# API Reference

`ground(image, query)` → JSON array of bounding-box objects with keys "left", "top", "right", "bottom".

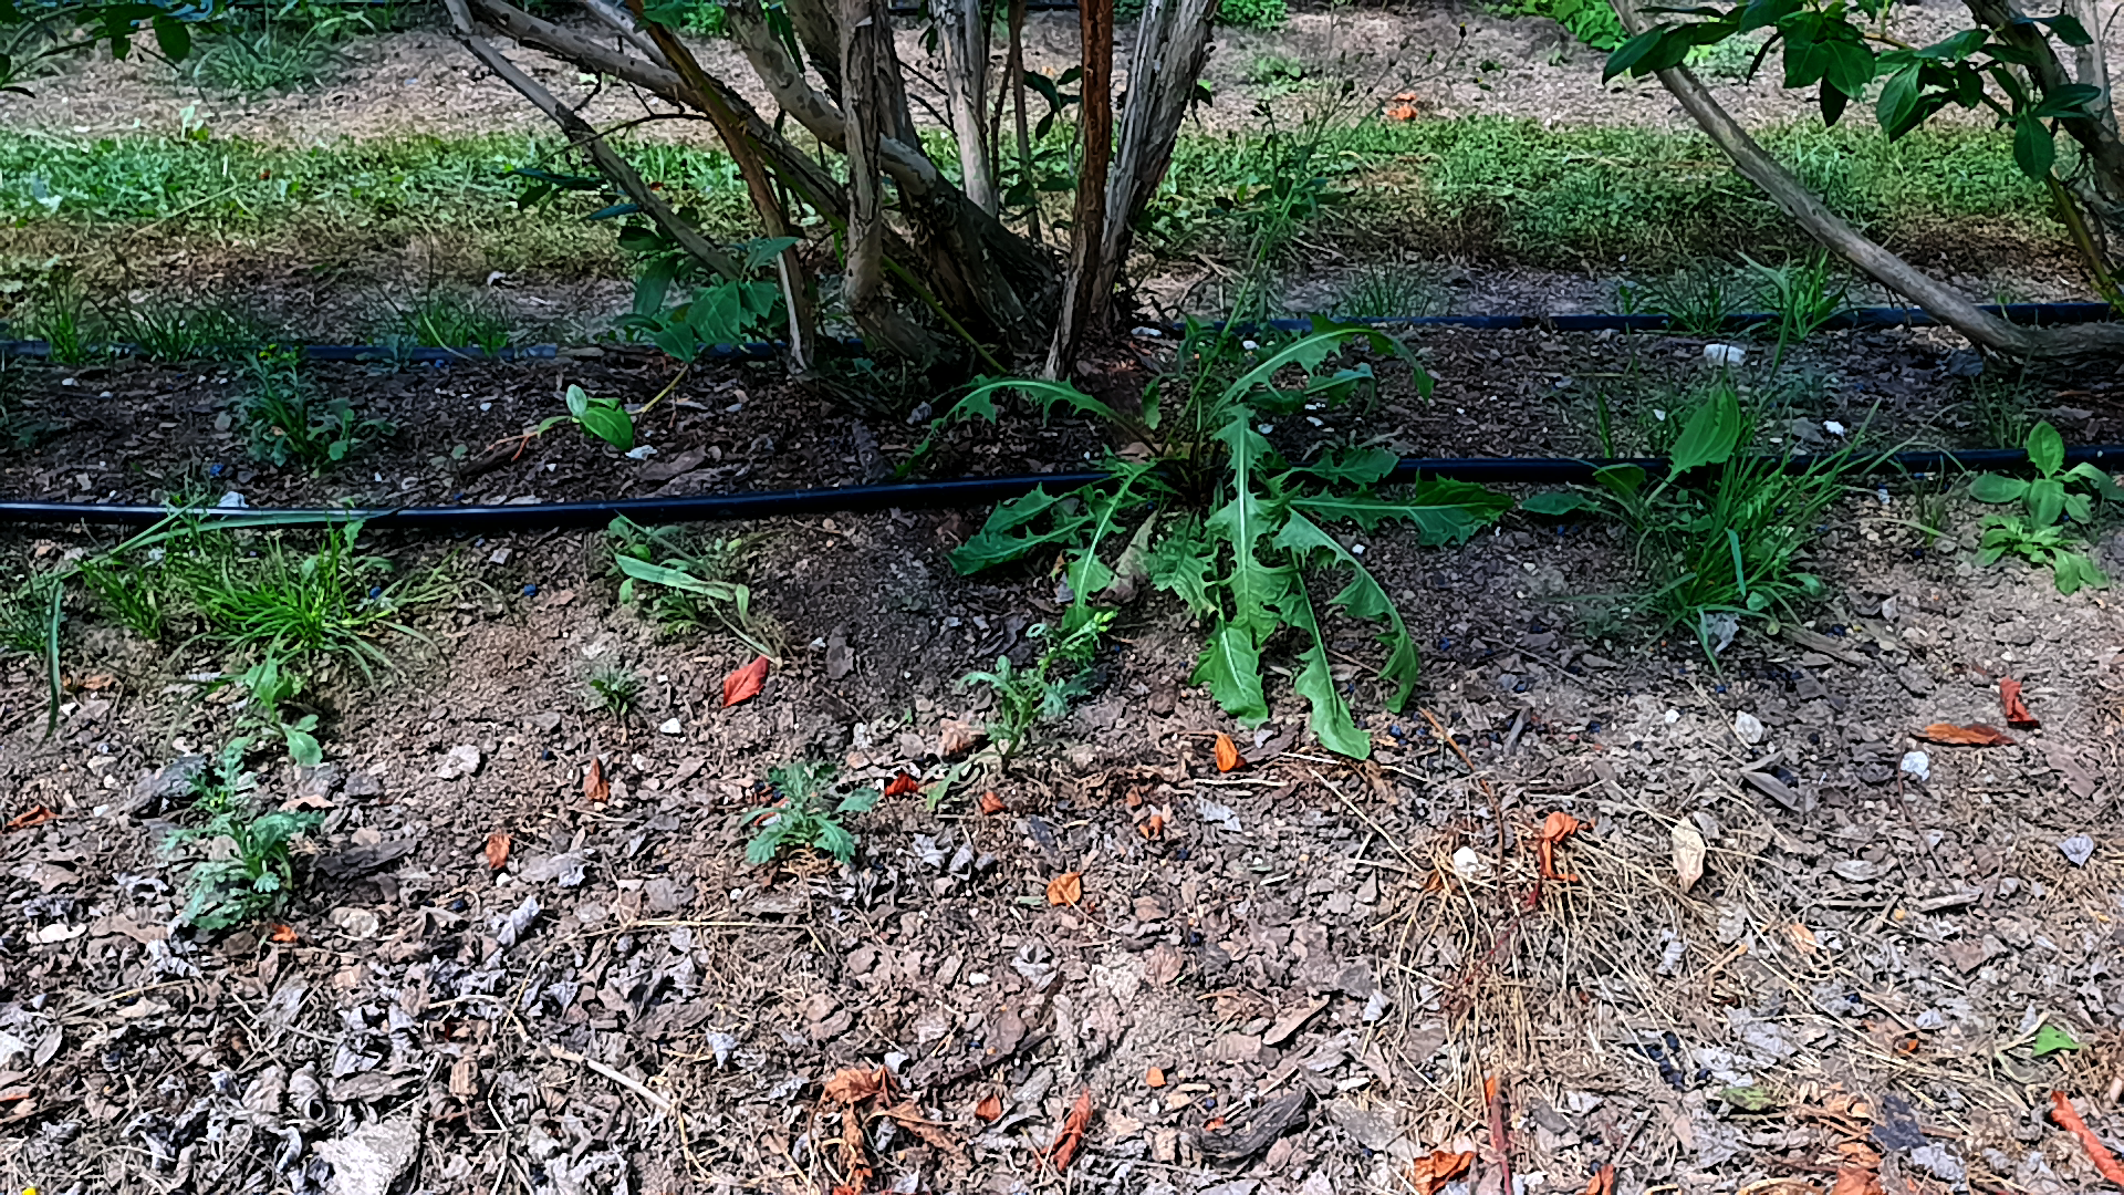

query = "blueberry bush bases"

[
  {"left": 1892, "top": 136, "right": 2124, "bottom": 485},
  {"left": 704, "top": 121, "right": 1196, "bottom": 522}
]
